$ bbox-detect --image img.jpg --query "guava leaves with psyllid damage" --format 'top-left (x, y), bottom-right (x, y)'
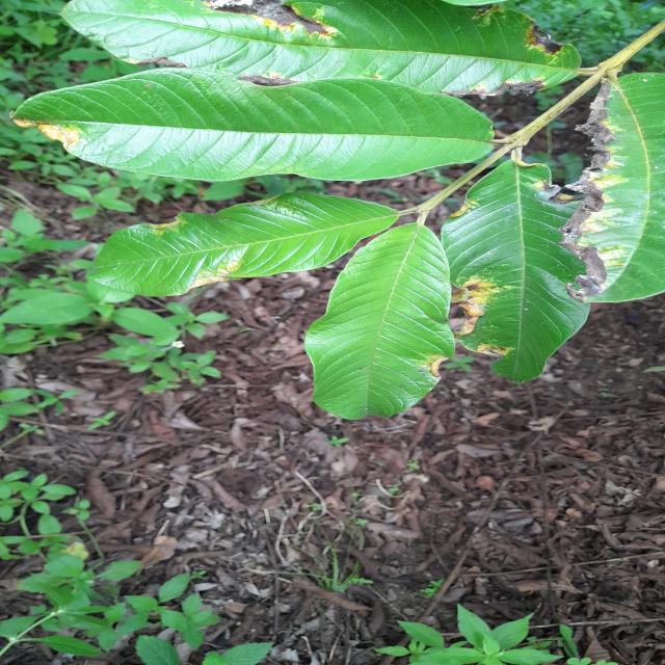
top-left (296, 217), bottom-right (468, 426)
top-left (72, 191), bottom-right (400, 318)
top-left (9, 62), bottom-right (520, 185)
